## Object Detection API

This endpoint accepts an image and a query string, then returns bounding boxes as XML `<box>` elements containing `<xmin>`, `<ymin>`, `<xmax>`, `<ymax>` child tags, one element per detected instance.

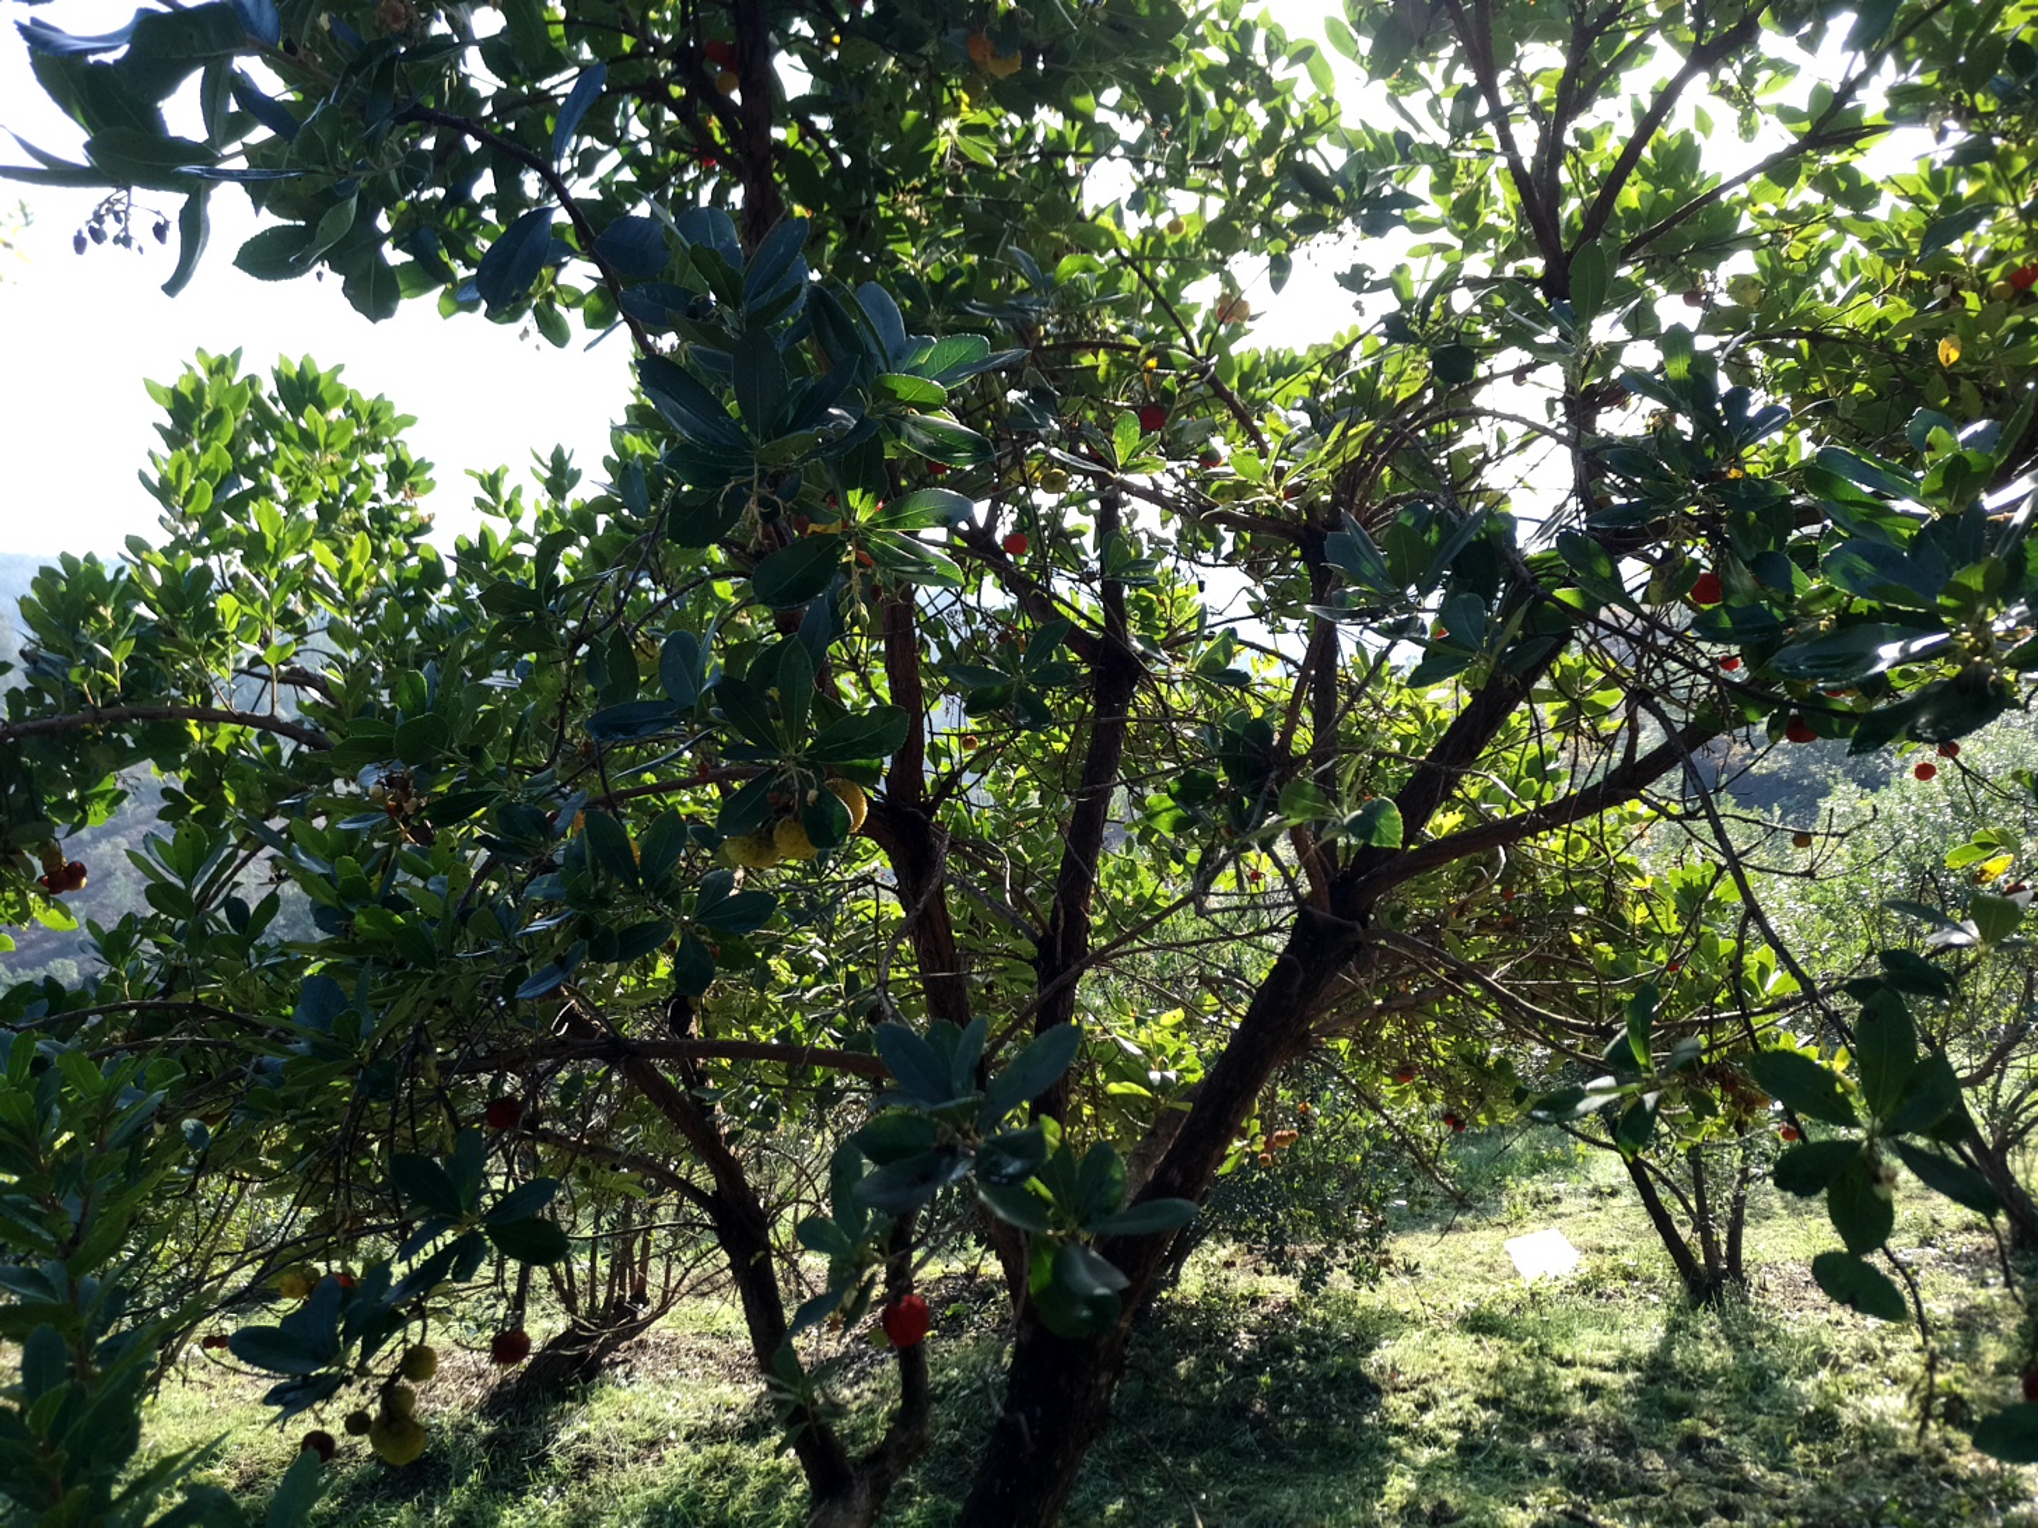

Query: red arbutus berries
<box><xmin>1139</xmin><ymin>405</ymin><xmax>1167</xmax><ymax>431</ymax></box>
<box><xmin>1455</xmin><ymin>1120</ymin><xmax>1466</xmax><ymax>1131</ymax></box>
<box><xmin>1721</xmin><ymin>654</ymin><xmax>1739</xmax><ymax>671</ymax></box>
<box><xmin>1005</xmin><ymin>532</ymin><xmax>1028</xmax><ymax>555</ymax></box>
<box><xmin>1781</xmin><ymin>1126</ymin><xmax>1798</xmax><ymax>1141</ymax></box>
<box><xmin>1690</xmin><ymin>571</ymin><xmax>1725</xmax><ymax>605</ymax></box>
<box><xmin>335</xmin><ymin>1273</ymin><xmax>354</xmax><ymax>1289</ymax></box>
<box><xmin>1786</xmin><ymin>711</ymin><xmax>1822</xmax><ymax>744</ymax></box>
<box><xmin>492</xmin><ymin>1330</ymin><xmax>531</xmax><ymax>1366</ymax></box>
<box><xmin>1939</xmin><ymin>739</ymin><xmax>1960</xmax><ymax>758</ymax></box>
<box><xmin>67</xmin><ymin>860</ymin><xmax>88</xmax><ymax>877</ymax></box>
<box><xmin>704</xmin><ymin>39</ymin><xmax>726</xmax><ymax>65</ymax></box>
<box><xmin>2010</xmin><ymin>261</ymin><xmax>2038</xmax><ymax>291</ymax></box>
<box><xmin>1443</xmin><ymin>1113</ymin><xmax>1456</xmax><ymax>1126</ymax></box>
<box><xmin>202</xmin><ymin>1335</ymin><xmax>216</xmax><ymax>1348</ymax></box>
<box><xmin>1201</xmin><ymin>449</ymin><xmax>1221</xmax><ymax>467</ymax></box>
<box><xmin>1251</xmin><ymin>870</ymin><xmax>1261</xmax><ymax>881</ymax></box>
<box><xmin>885</xmin><ymin>1296</ymin><xmax>932</xmax><ymax>1347</ymax></box>
<box><xmin>1666</xmin><ymin>962</ymin><xmax>1680</xmax><ymax>972</ymax></box>
<box><xmin>1397</xmin><ymin>1065</ymin><xmax>1415</xmax><ymax>1082</ymax></box>
<box><xmin>692</xmin><ymin>142</ymin><xmax>718</xmax><ymax>169</ymax></box>
<box><xmin>301</xmin><ymin>1431</ymin><xmax>335</xmax><ymax>1464</ymax></box>
<box><xmin>925</xmin><ymin>457</ymin><xmax>949</xmax><ymax>476</ymax></box>
<box><xmin>45</xmin><ymin>872</ymin><xmax>68</xmax><ymax>896</ymax></box>
<box><xmin>486</xmin><ymin>1097</ymin><xmax>522</xmax><ymax>1128</ymax></box>
<box><xmin>1501</xmin><ymin>886</ymin><xmax>1514</xmax><ymax>901</ymax></box>
<box><xmin>1915</xmin><ymin>762</ymin><xmax>1936</xmax><ymax>781</ymax></box>
<box><xmin>216</xmin><ymin>1335</ymin><xmax>230</xmax><ymax>1349</ymax></box>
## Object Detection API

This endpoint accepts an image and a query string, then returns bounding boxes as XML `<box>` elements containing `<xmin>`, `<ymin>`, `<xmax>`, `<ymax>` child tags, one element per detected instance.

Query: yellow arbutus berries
<box><xmin>67</xmin><ymin>873</ymin><xmax>88</xmax><ymax>893</ymax></box>
<box><xmin>1166</xmin><ymin>218</ymin><xmax>1185</xmax><ymax>235</ymax></box>
<box><xmin>986</xmin><ymin>40</ymin><xmax>1027</xmax><ymax>77</ymax></box>
<box><xmin>43</xmin><ymin>848</ymin><xmax>67</xmax><ymax>872</ymax></box>
<box><xmin>962</xmin><ymin>735</ymin><xmax>978</xmax><ymax>750</ymax></box>
<box><xmin>1275</xmin><ymin>1130</ymin><xmax>1290</xmax><ymax>1148</ymax></box>
<box><xmin>1218</xmin><ymin>305</ymin><xmax>1235</xmax><ymax>321</ymax></box>
<box><xmin>1756</xmin><ymin>1096</ymin><xmax>1770</xmax><ymax>1107</ymax></box>
<box><xmin>805</xmin><ymin>776</ymin><xmax>871</xmax><ymax>834</ymax></box>
<box><xmin>1258</xmin><ymin>1152</ymin><xmax>1271</xmax><ymax>1166</ymax></box>
<box><xmin>1233</xmin><ymin>300</ymin><xmax>1251</xmax><ymax>322</ymax></box>
<box><xmin>965</xmin><ymin>33</ymin><xmax>995</xmax><ymax>64</ymax></box>
<box><xmin>727</xmin><ymin>828</ymin><xmax>780</xmax><ymax>870</ymax></box>
<box><xmin>772</xmin><ymin>813</ymin><xmax>823</xmax><ymax>860</ymax></box>
<box><xmin>1792</xmin><ymin>830</ymin><xmax>1811</xmax><ymax>848</ymax></box>
<box><xmin>1298</xmin><ymin>1101</ymin><xmax>1311</xmax><ymax>1115</ymax></box>
<box><xmin>1217</xmin><ymin>291</ymin><xmax>1234</xmax><ymax>305</ymax></box>
<box><xmin>1287</xmin><ymin>1130</ymin><xmax>1299</xmax><ymax>1141</ymax></box>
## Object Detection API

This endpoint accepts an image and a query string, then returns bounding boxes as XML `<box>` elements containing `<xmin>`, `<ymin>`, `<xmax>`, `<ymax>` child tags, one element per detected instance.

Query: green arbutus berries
<box><xmin>278</xmin><ymin>1265</ymin><xmax>320</xmax><ymax>1299</ymax></box>
<box><xmin>372</xmin><ymin>1414</ymin><xmax>425</xmax><ymax>1467</ymax></box>
<box><xmin>1041</xmin><ymin>468</ymin><xmax>1069</xmax><ymax>494</ymax></box>
<box><xmin>1992</xmin><ymin>280</ymin><xmax>2015</xmax><ymax>301</ymax></box>
<box><xmin>714</xmin><ymin>70</ymin><xmax>740</xmax><ymax>94</ymax></box>
<box><xmin>384</xmin><ymin>1386</ymin><xmax>417</xmax><ymax>1411</ymax></box>
<box><xmin>401</xmin><ymin>1345</ymin><xmax>437</xmax><ymax>1382</ymax></box>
